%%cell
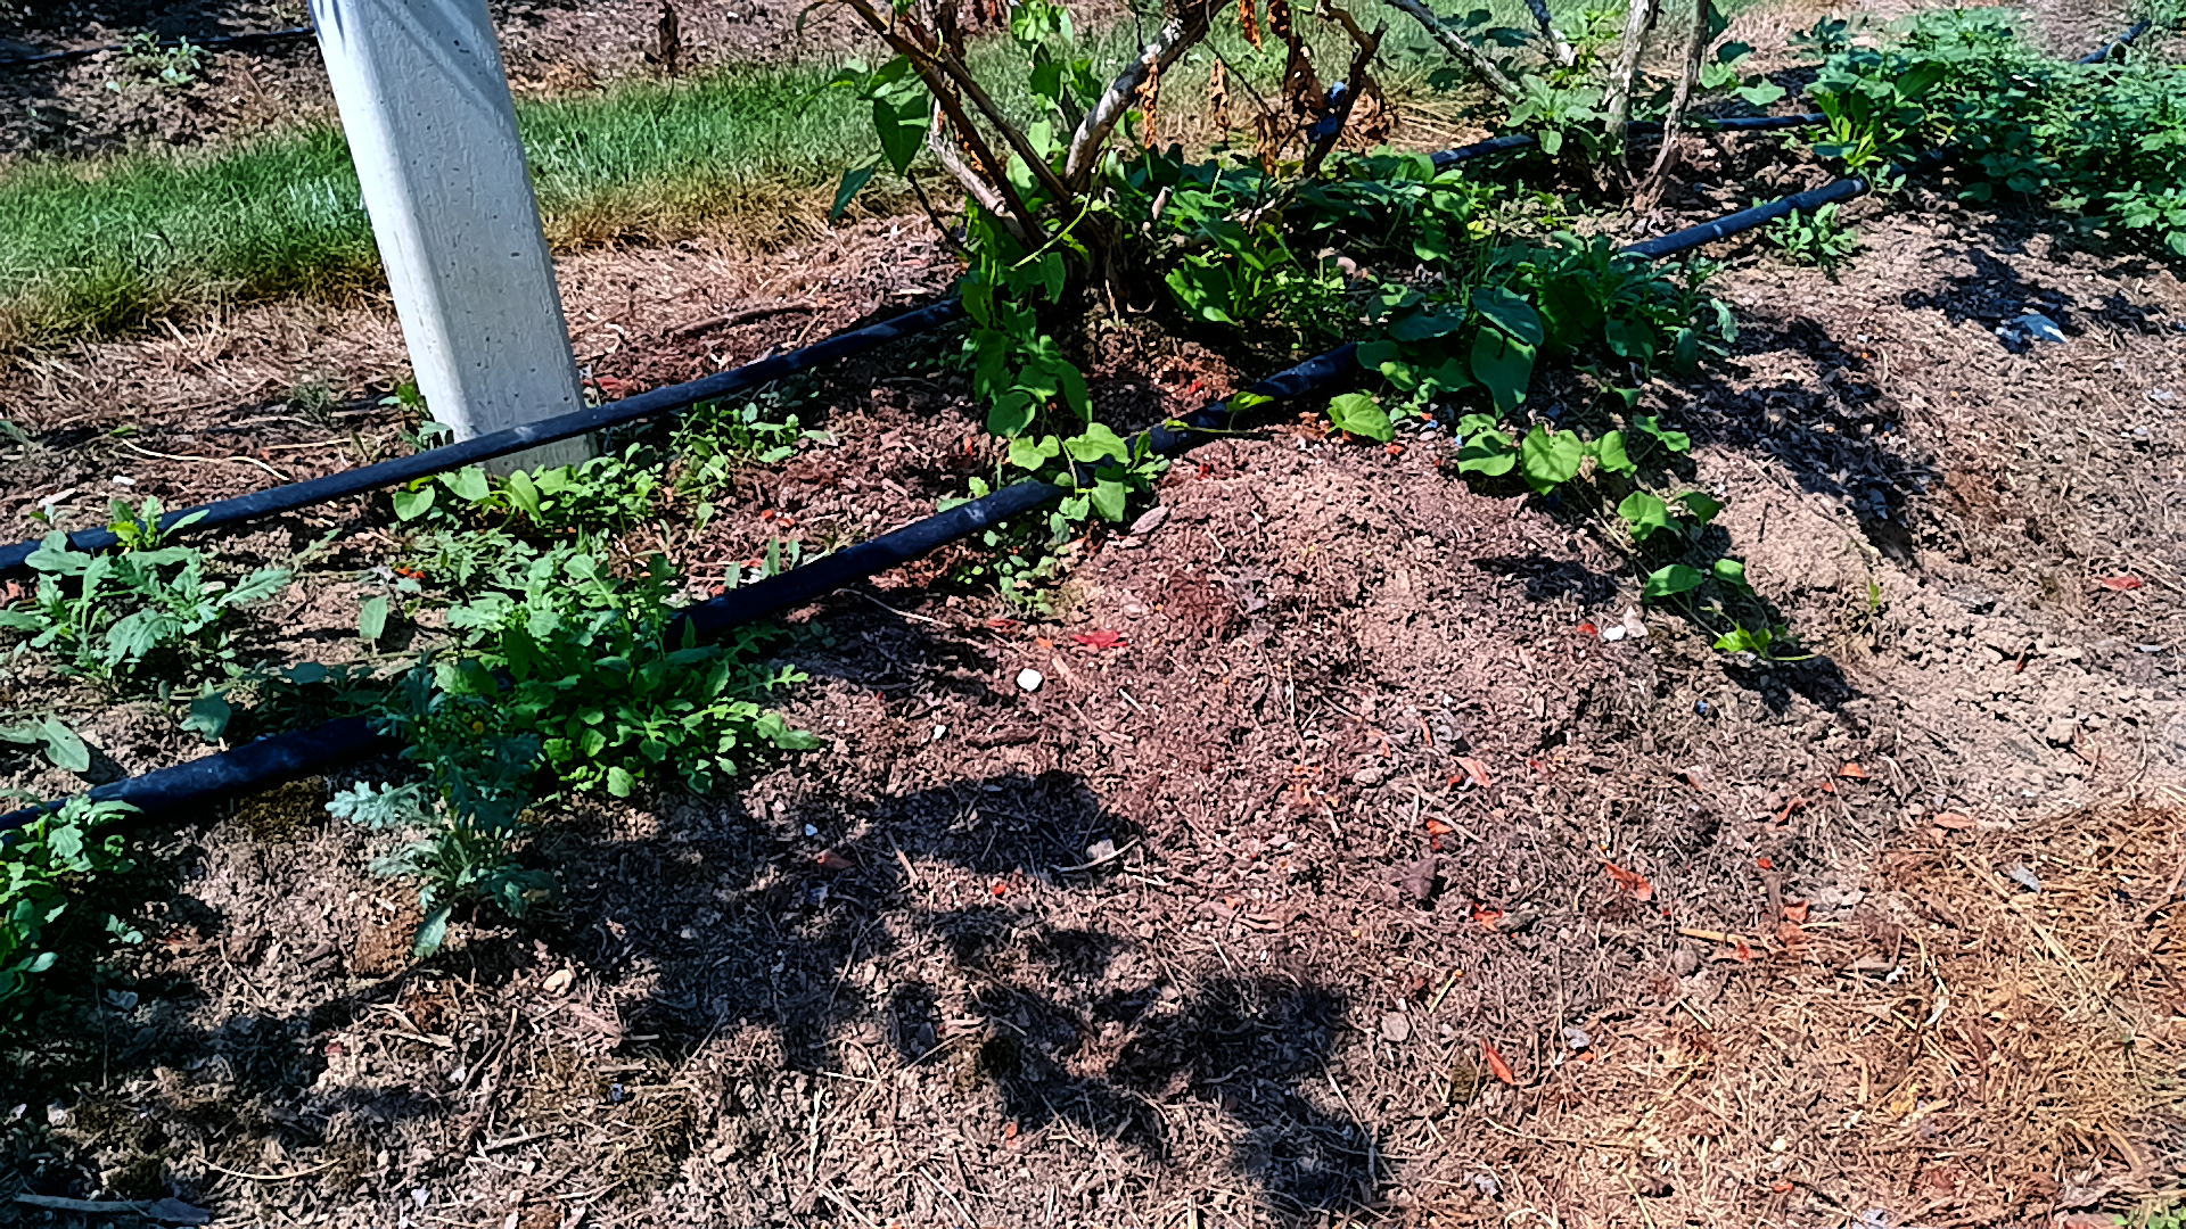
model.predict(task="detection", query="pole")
[283,3,633,509]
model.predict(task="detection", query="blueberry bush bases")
[1454,40,1759,253]
[865,128,1313,442]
